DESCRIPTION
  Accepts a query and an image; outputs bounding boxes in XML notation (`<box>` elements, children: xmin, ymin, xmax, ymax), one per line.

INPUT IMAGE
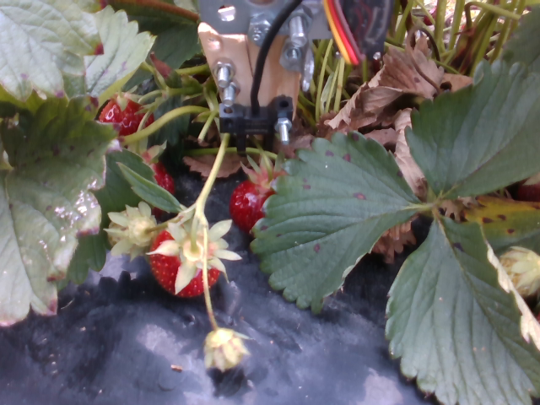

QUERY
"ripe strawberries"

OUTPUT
<box><xmin>102</xmin><ymin>101</ymin><xmax>155</xmax><ymax>148</ymax></box>
<box><xmin>153</xmin><ymin>224</ymin><xmax>226</xmax><ymax>298</ymax></box>
<box><xmin>228</xmin><ymin>177</ymin><xmax>289</xmax><ymax>232</ymax></box>
<box><xmin>119</xmin><ymin>158</ymin><xmax>173</xmax><ymax>213</ymax></box>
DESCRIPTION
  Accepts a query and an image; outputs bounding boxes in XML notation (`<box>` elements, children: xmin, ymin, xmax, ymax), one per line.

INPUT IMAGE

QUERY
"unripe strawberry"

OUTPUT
<box><xmin>206</xmin><ymin>327</ymin><xmax>244</xmax><ymax>371</ymax></box>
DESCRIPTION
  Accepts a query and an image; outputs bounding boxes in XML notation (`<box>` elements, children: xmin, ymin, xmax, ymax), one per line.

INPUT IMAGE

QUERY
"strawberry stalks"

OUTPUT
<box><xmin>183</xmin><ymin>211</ymin><xmax>206</xmax><ymax>266</ymax></box>
<box><xmin>200</xmin><ymin>229</ymin><xmax>228</xmax><ymax>338</ymax></box>
<box><xmin>248</xmin><ymin>135</ymin><xmax>279</xmax><ymax>193</ymax></box>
